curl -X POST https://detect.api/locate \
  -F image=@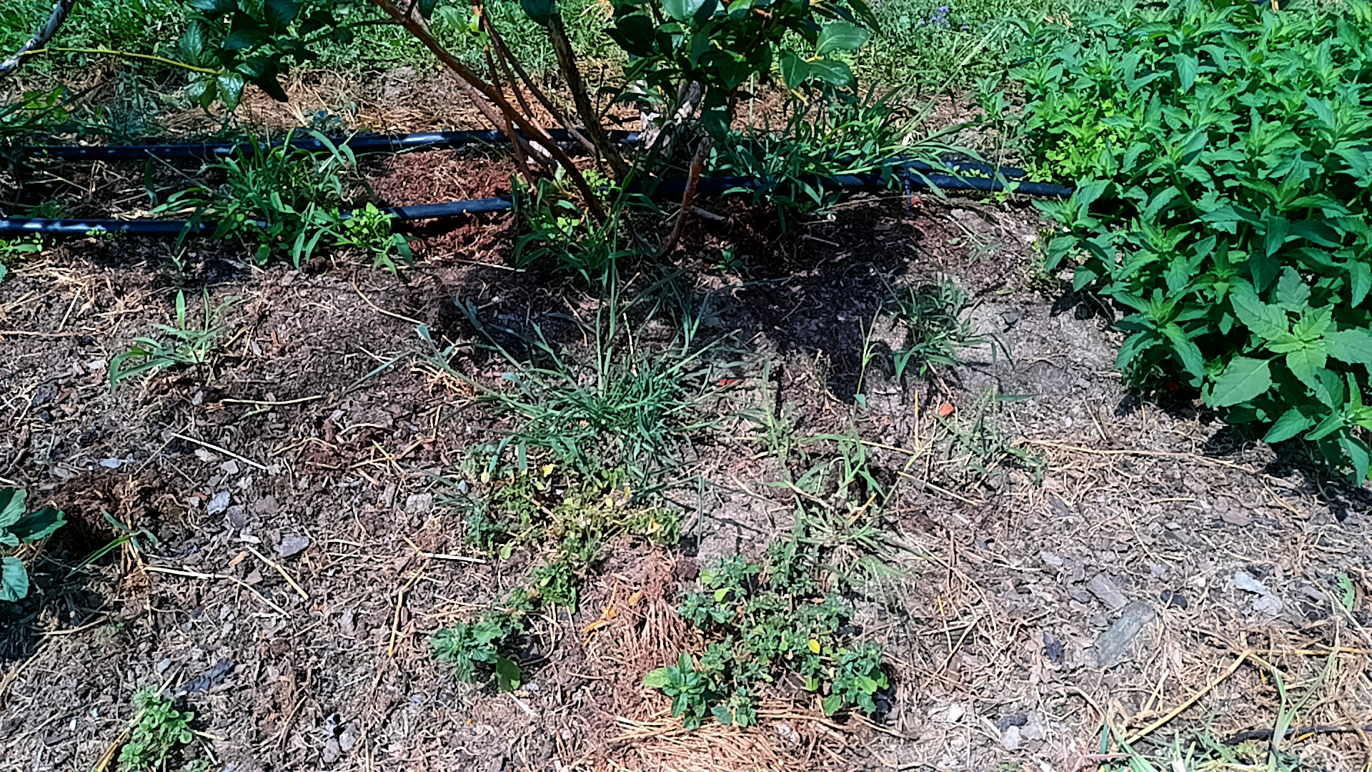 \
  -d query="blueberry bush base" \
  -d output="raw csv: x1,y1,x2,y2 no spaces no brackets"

439,39,764,300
